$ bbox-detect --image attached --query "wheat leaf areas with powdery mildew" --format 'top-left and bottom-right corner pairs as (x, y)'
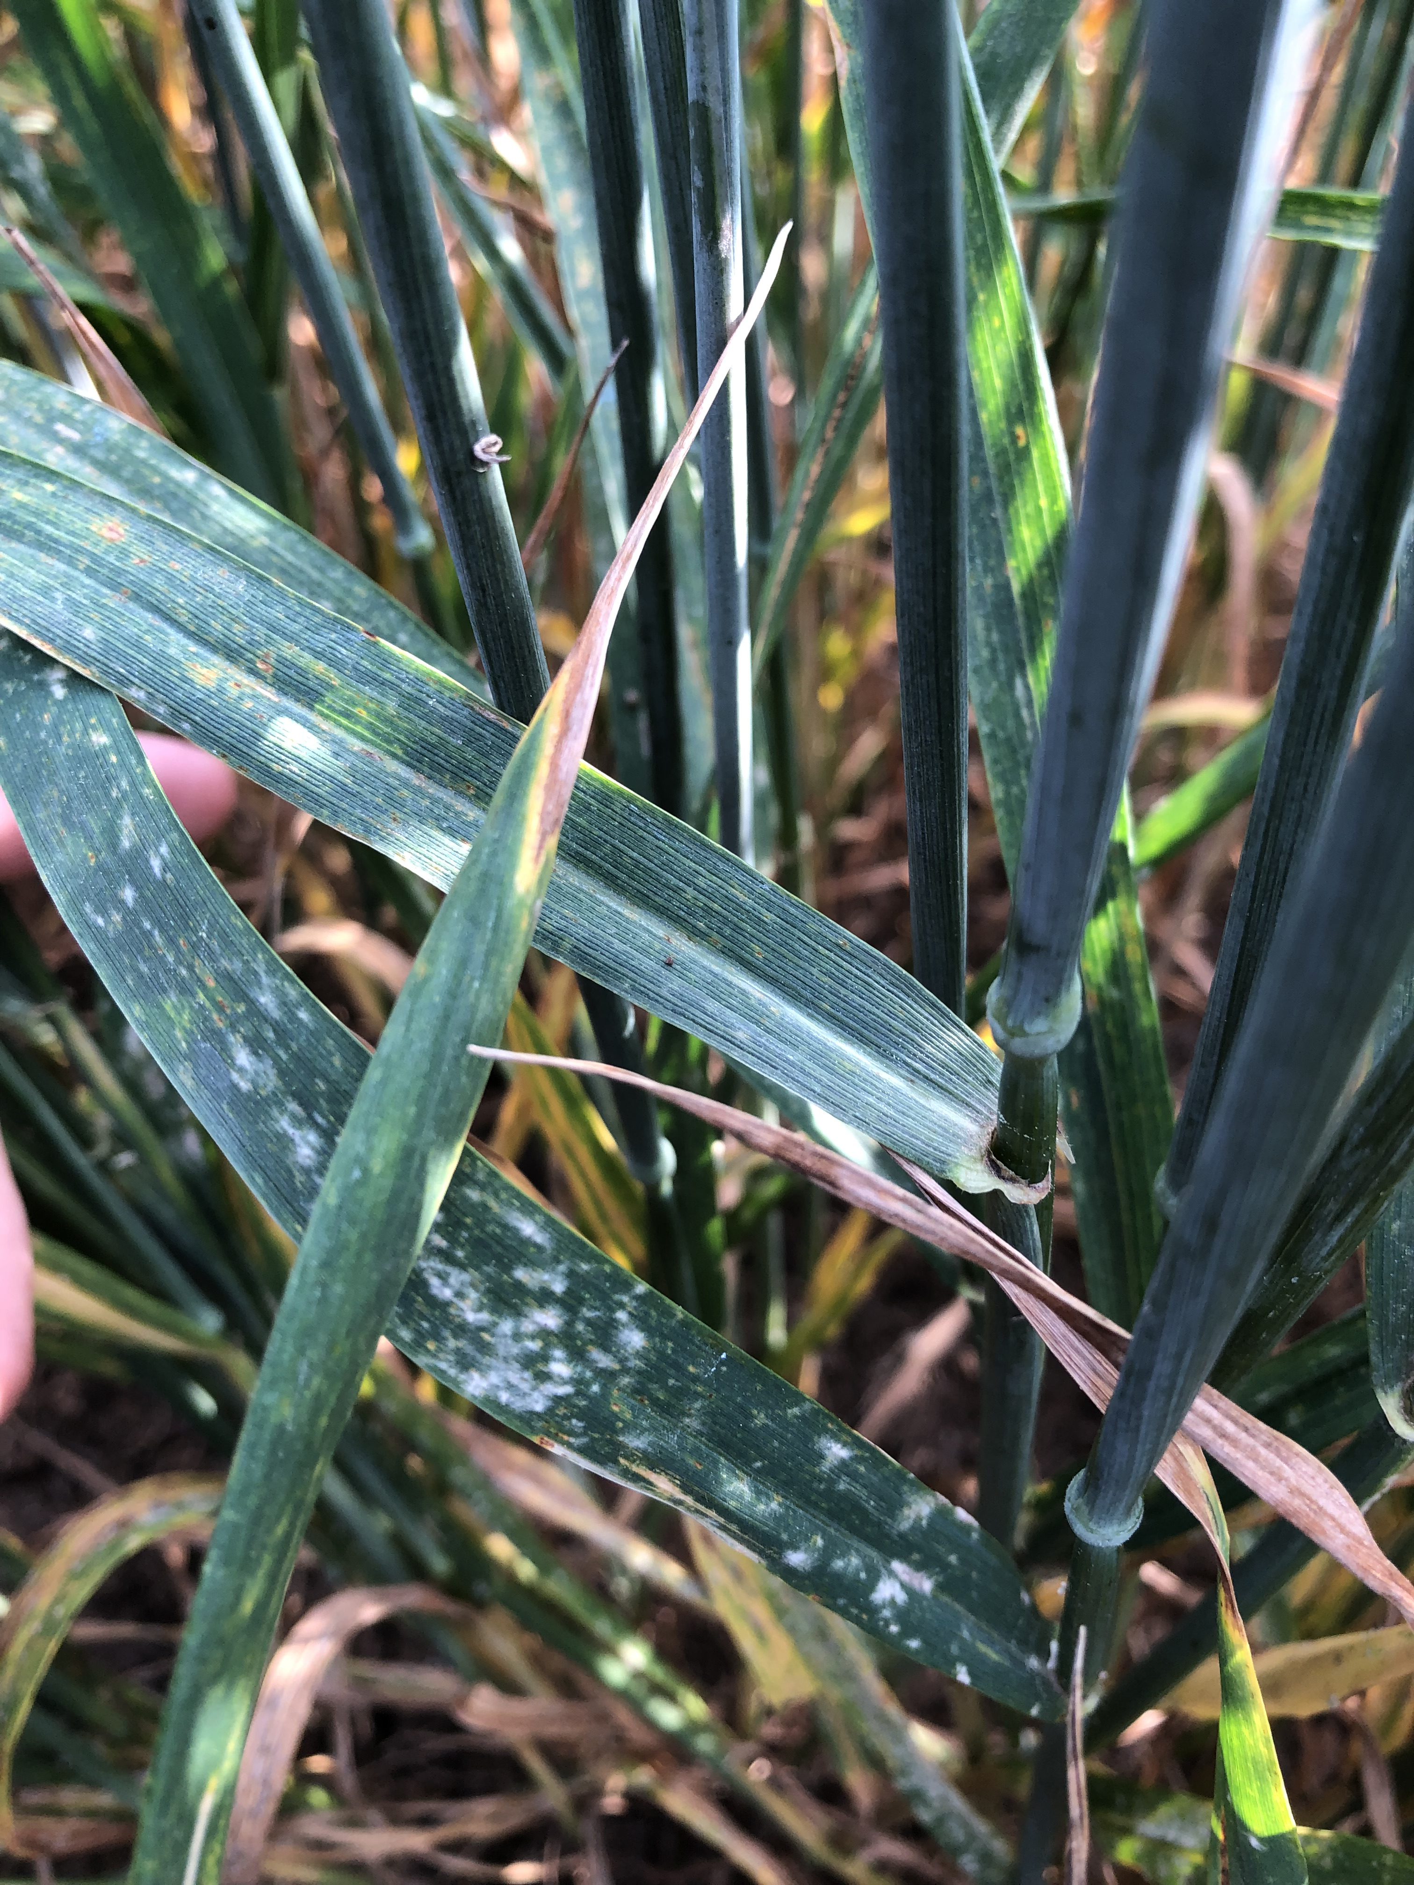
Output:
(0, 645), (364, 1230)
(5, 357), (517, 848)
(805, 1632), (1044, 1885)
(403, 1136), (1032, 1699)
(964, 567), (1065, 817)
